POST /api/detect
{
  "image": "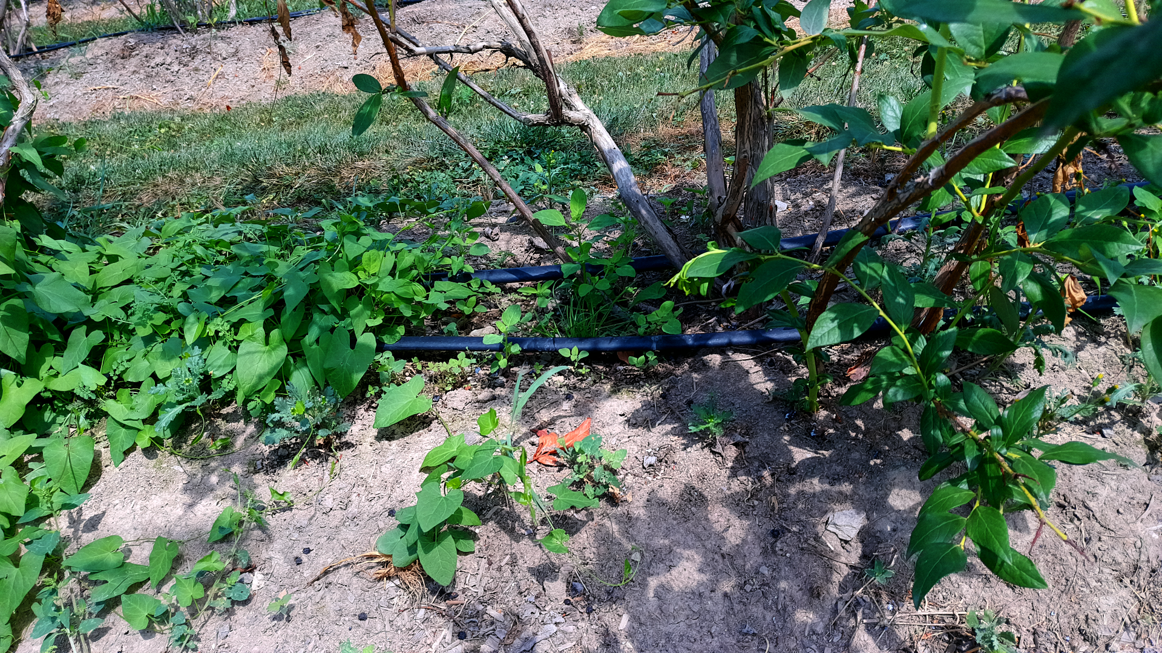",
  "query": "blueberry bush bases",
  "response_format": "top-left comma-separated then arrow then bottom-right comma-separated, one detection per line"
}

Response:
153,1 -> 237,45
519,101 -> 935,381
